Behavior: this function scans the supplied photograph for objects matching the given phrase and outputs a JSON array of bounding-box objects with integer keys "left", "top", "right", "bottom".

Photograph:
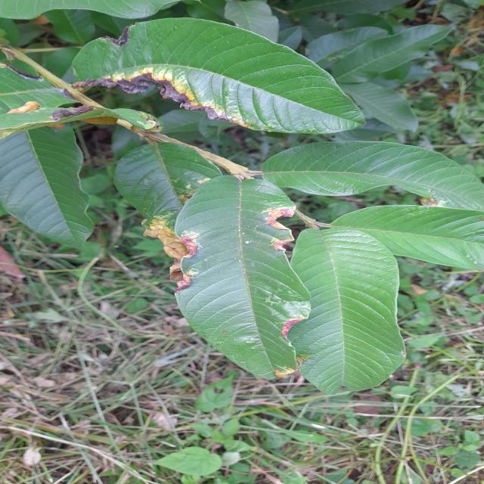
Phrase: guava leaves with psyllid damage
[
  {"left": 179, "top": 167, "right": 320, "bottom": 406},
  {"left": 50, "top": 14, "right": 396, "bottom": 146}
]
